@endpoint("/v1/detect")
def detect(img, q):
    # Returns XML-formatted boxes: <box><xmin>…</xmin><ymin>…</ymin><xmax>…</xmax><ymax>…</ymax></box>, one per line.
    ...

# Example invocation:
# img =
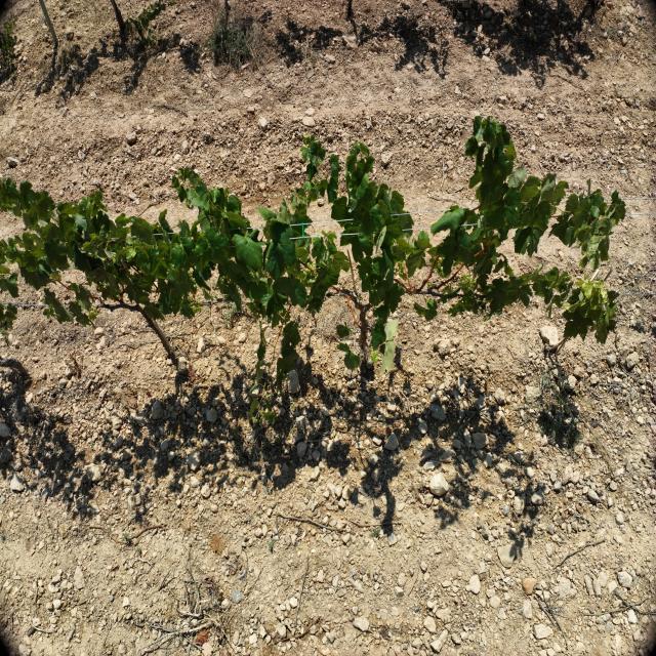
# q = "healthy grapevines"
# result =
<box><xmin>253</xmin><ymin>104</ymin><xmax>632</xmax><ymax>388</ymax></box>
<box><xmin>0</xmin><ymin>157</ymin><xmax>257</xmax><ymax>395</ymax></box>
